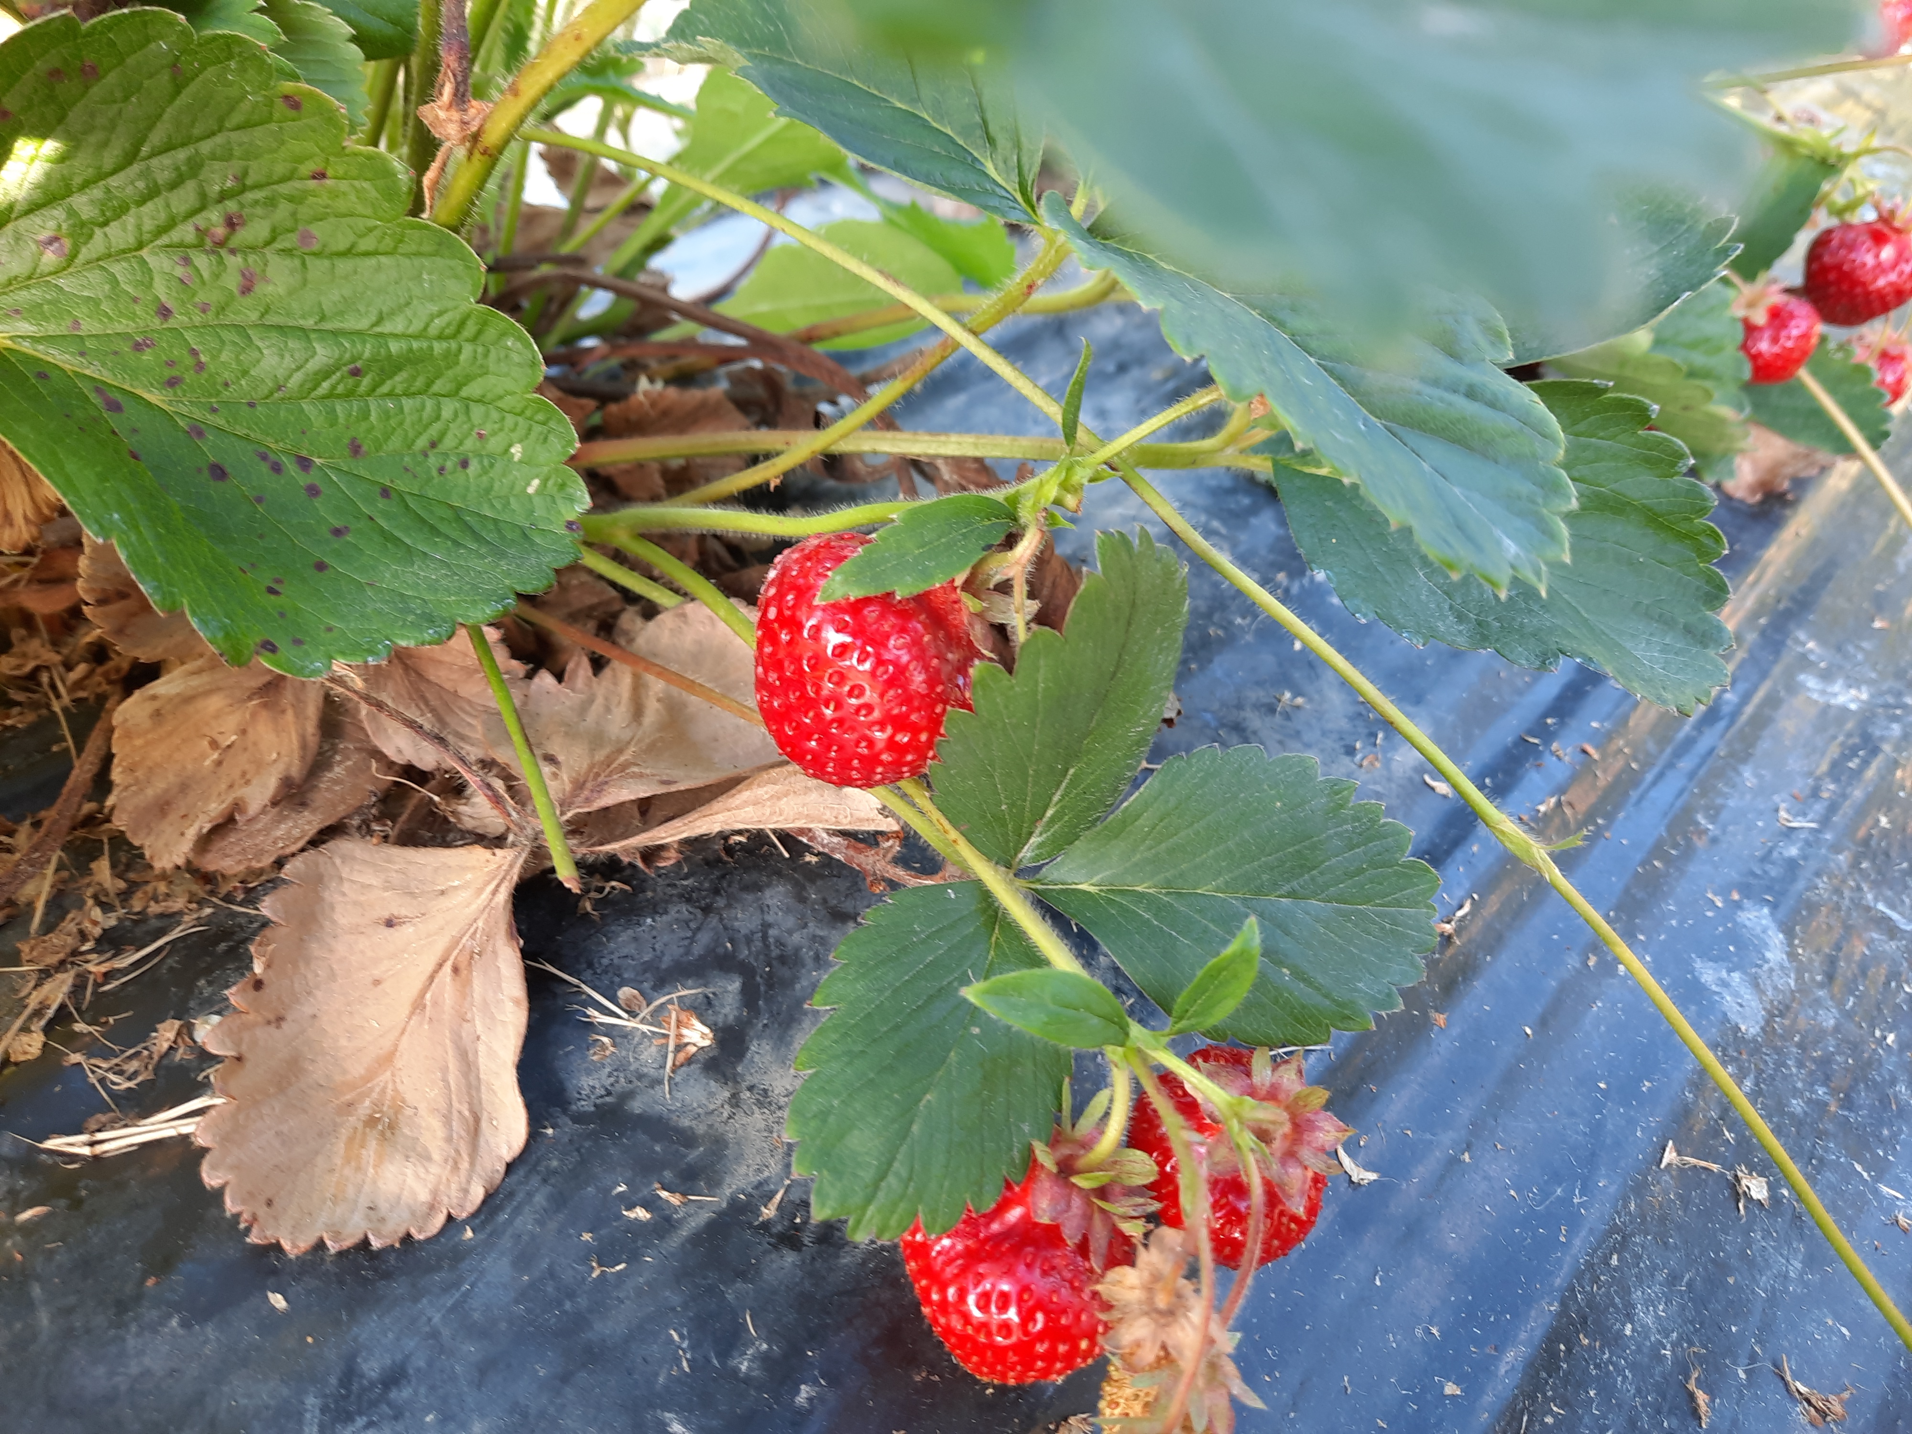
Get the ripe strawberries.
[1108,1045,1315,1251]
[750,544,1028,772]
[1796,234,1907,319]
[882,1157,1115,1360]
[1726,296,1817,377]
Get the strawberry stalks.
[1044,1029,1132,1232]
[1718,258,1769,326]
[1156,1049,1300,1200]
[929,491,1064,647]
